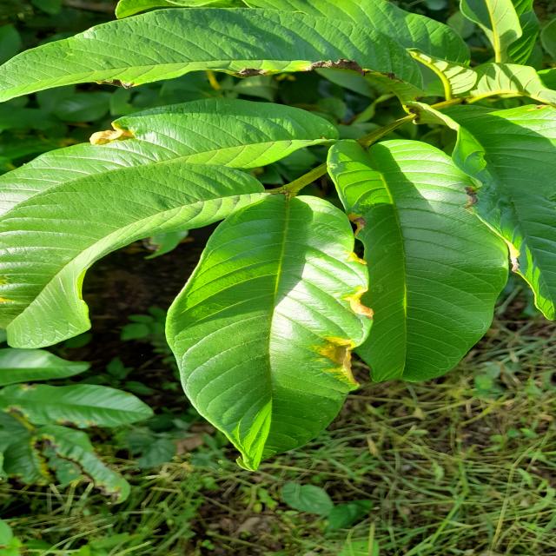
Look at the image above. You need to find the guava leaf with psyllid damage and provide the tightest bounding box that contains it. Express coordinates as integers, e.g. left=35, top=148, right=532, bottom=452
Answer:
left=159, top=192, right=372, bottom=481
